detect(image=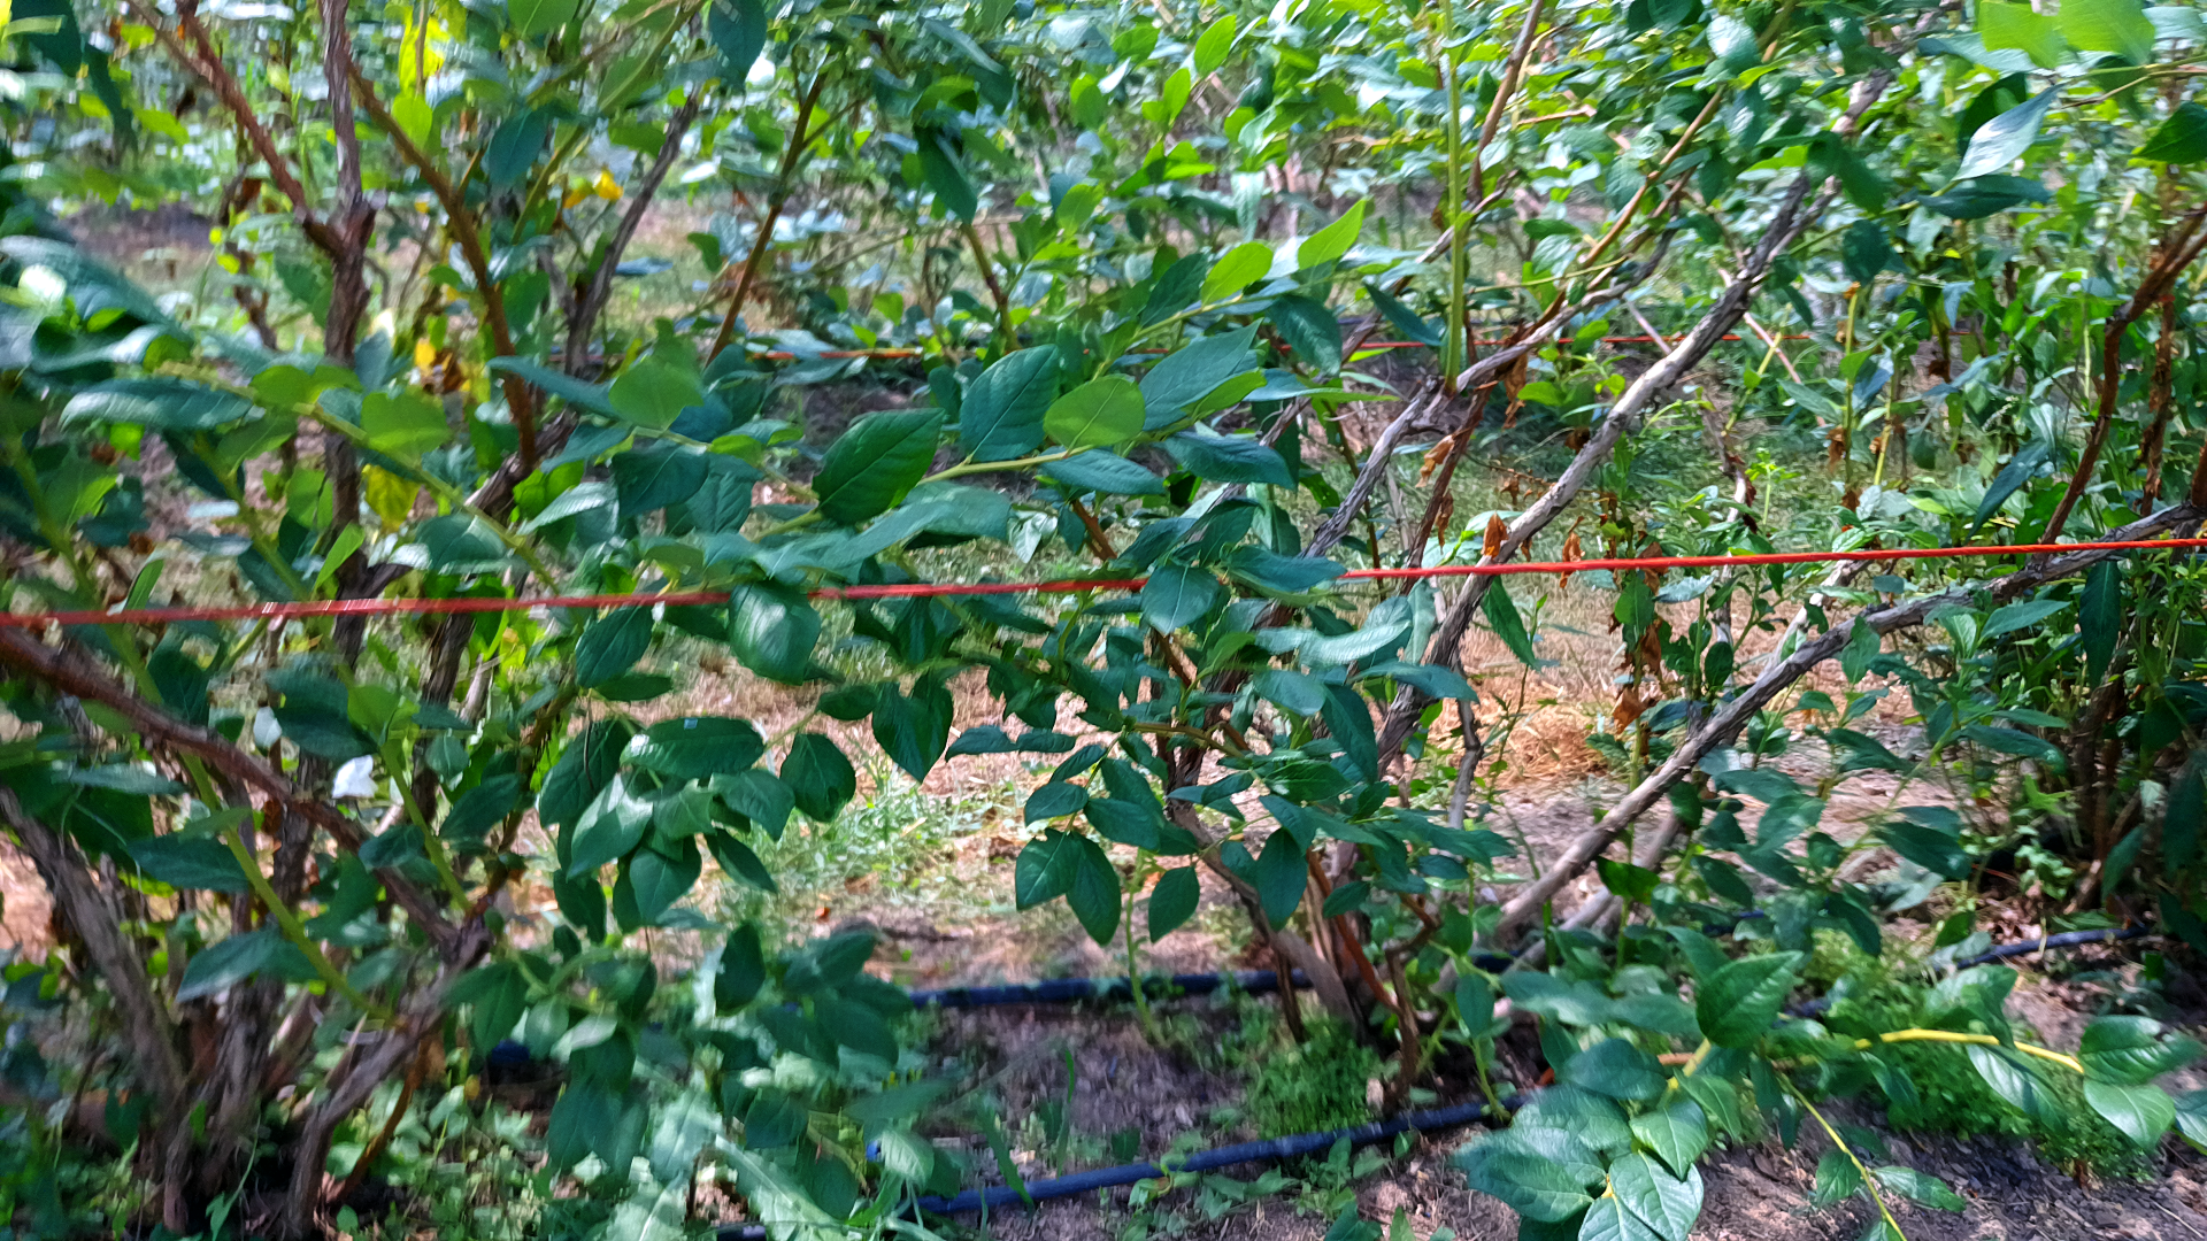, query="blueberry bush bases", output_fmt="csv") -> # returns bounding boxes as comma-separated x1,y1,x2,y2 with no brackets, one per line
1,892,480,1241
1968,643,2197,989
1091,664,1684,1197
